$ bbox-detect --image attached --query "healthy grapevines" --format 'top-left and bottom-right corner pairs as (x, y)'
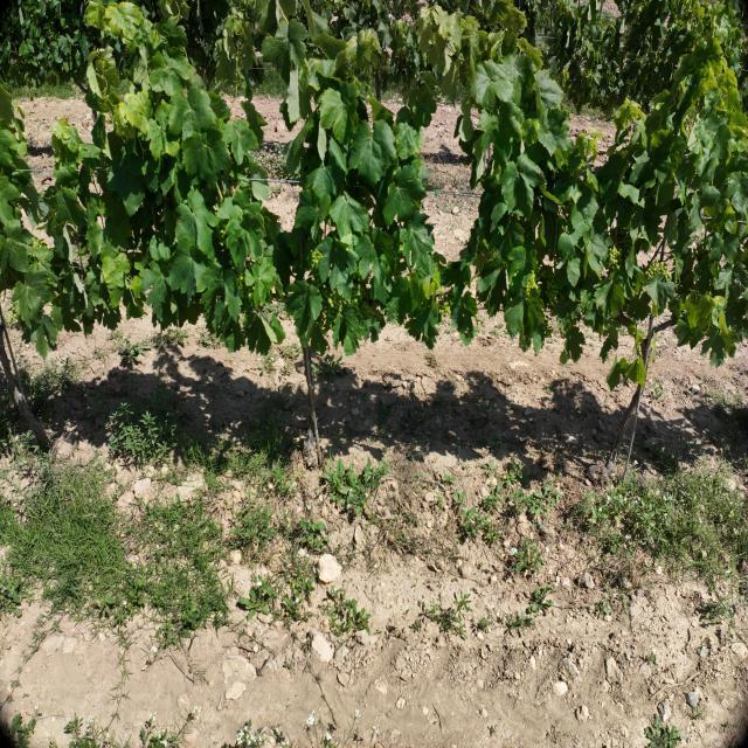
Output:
(65, 0), (462, 496)
(444, 0), (748, 491)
